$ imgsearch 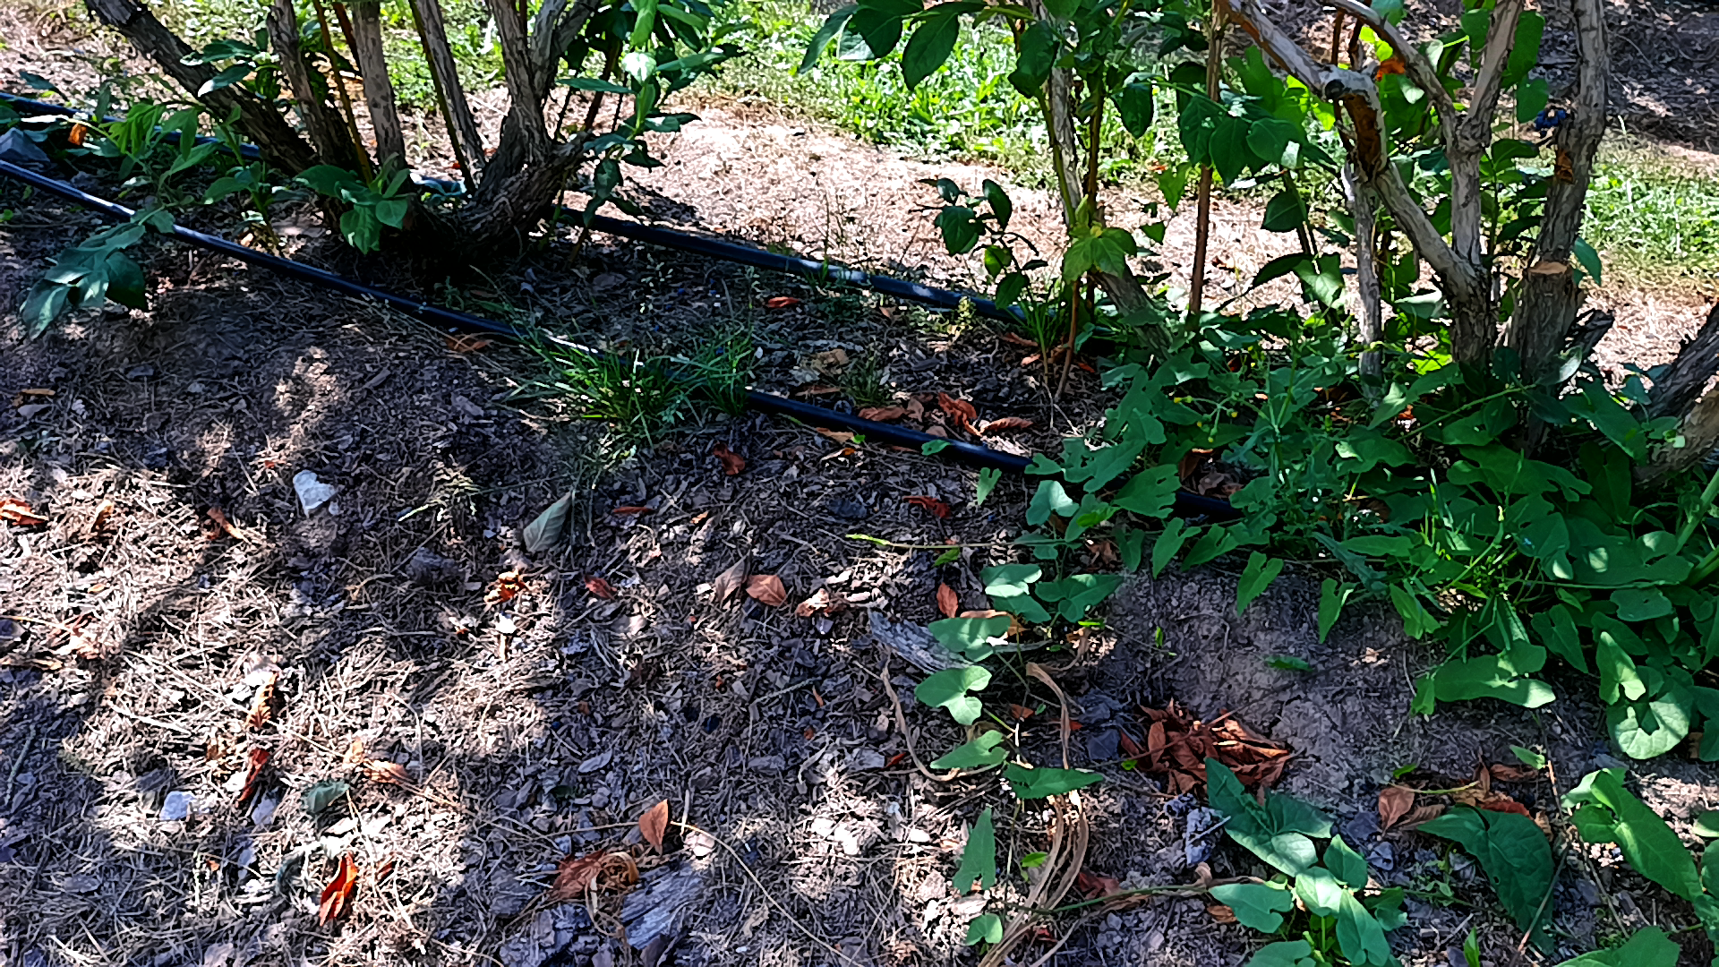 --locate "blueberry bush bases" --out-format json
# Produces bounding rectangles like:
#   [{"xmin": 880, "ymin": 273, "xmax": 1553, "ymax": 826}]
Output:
[
  {"xmin": 182, "ymin": 47, "xmax": 655, "ymax": 395},
  {"xmin": 1173, "ymin": 184, "xmax": 1719, "ymax": 675}
]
